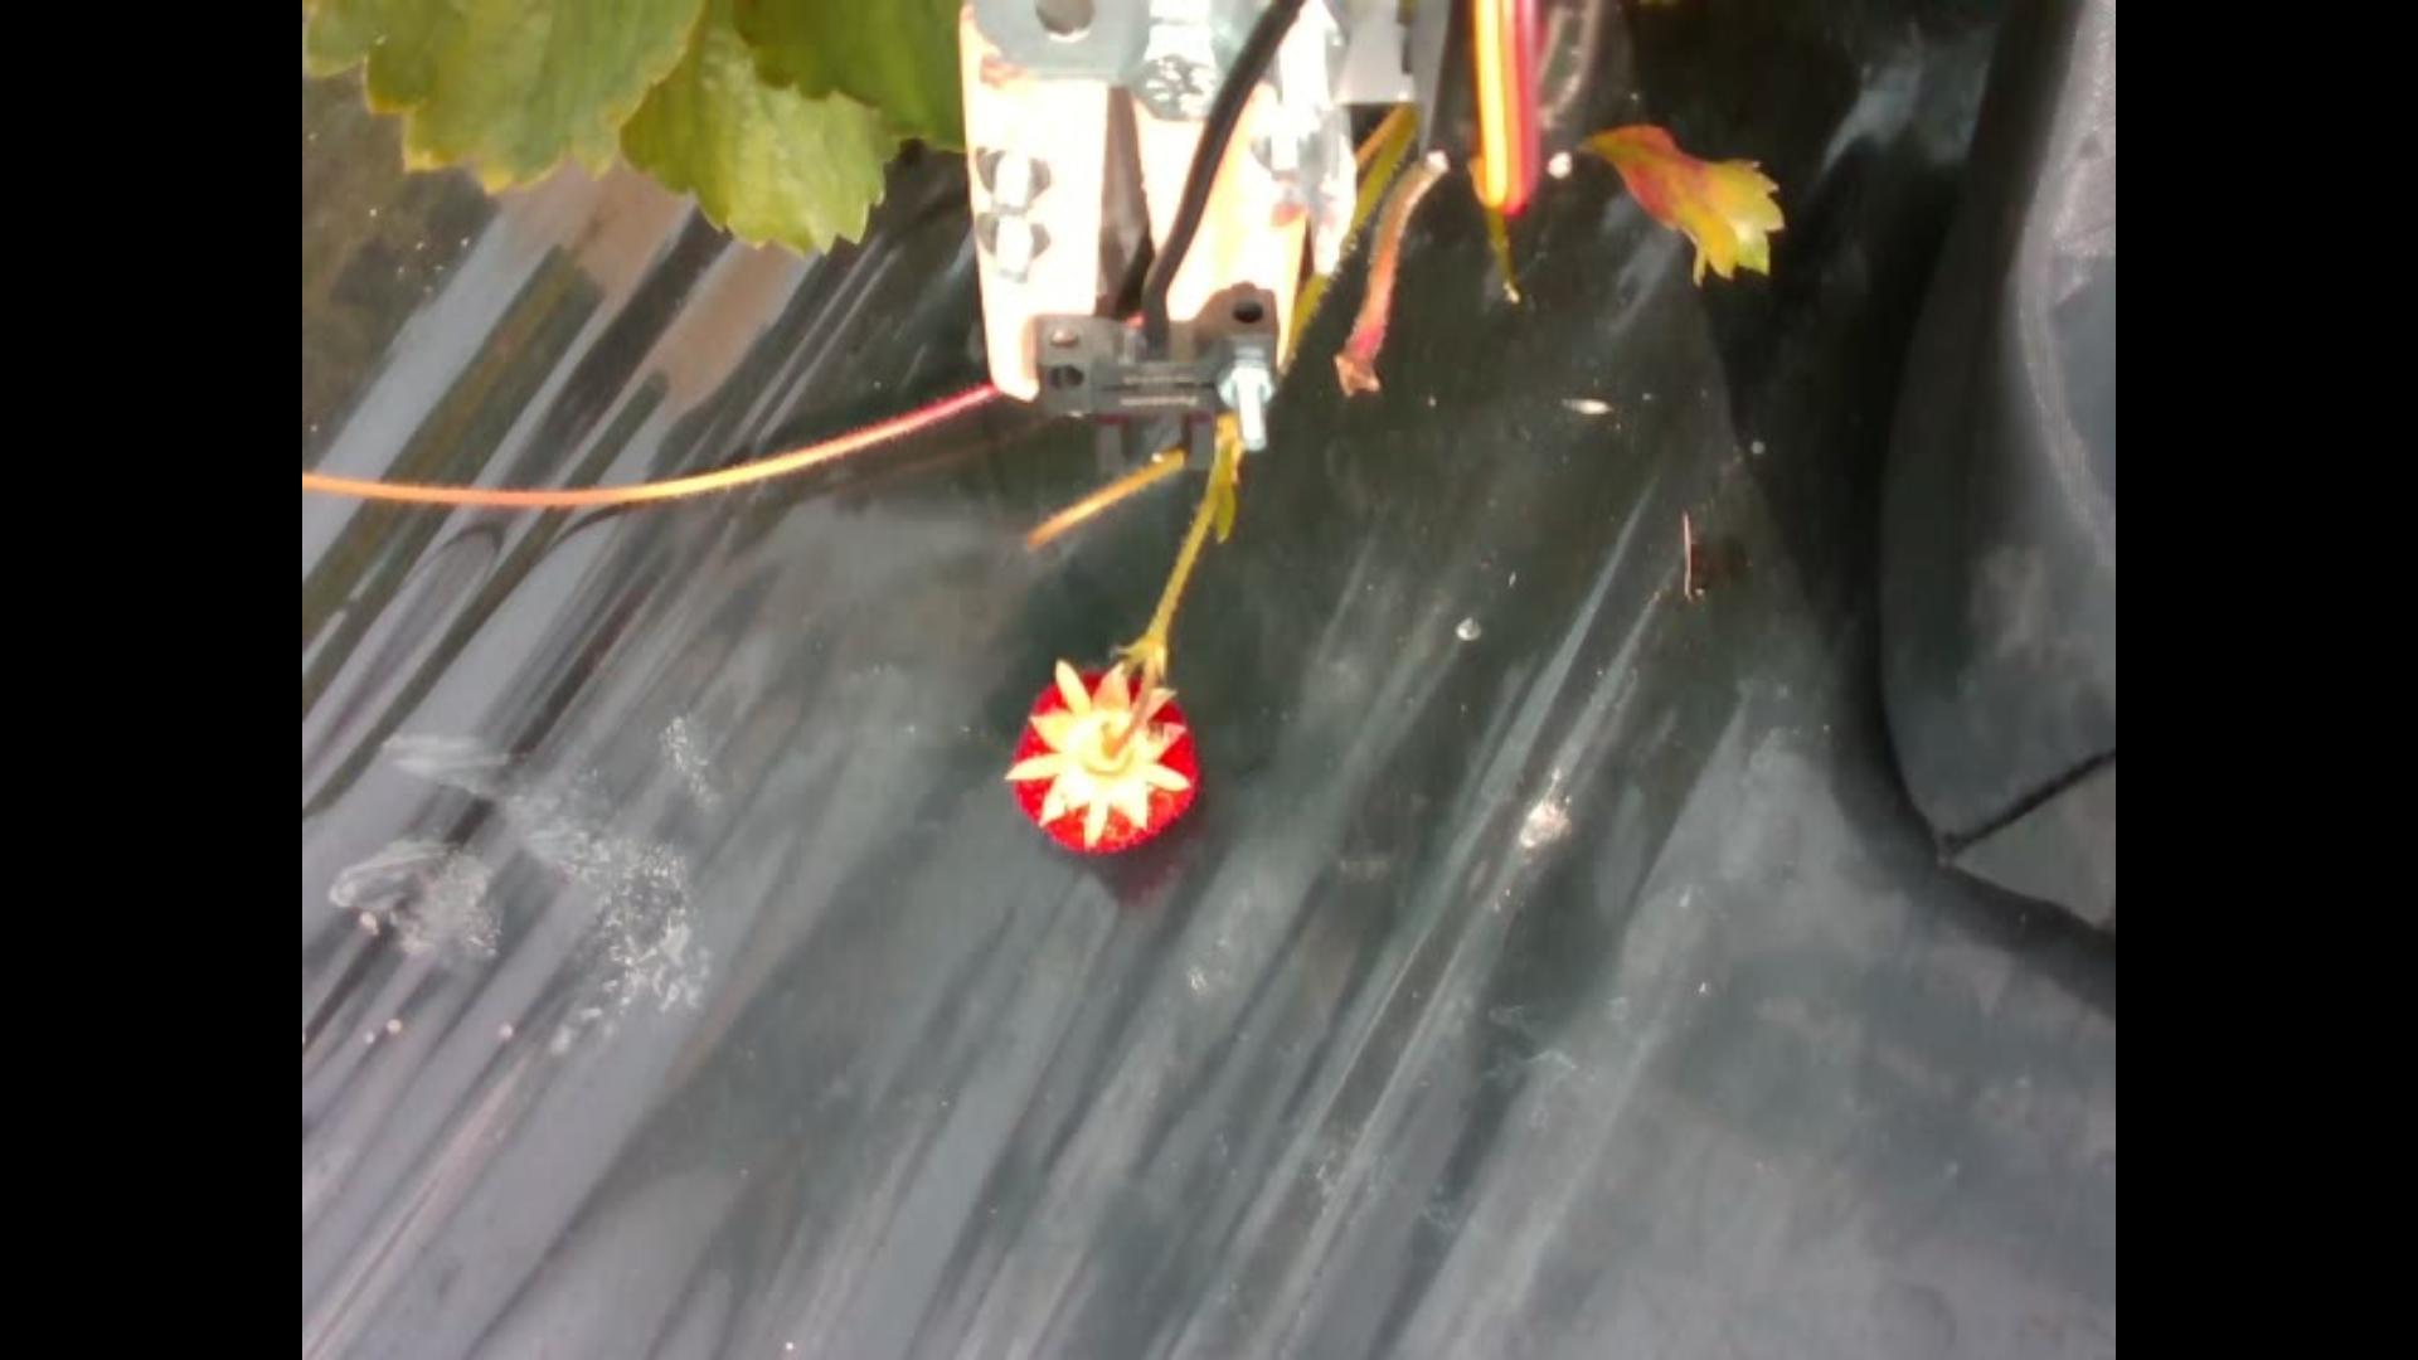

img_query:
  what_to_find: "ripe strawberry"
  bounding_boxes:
[982,653,1245,881]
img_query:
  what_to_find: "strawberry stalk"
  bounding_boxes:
[1093,499,1198,757]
